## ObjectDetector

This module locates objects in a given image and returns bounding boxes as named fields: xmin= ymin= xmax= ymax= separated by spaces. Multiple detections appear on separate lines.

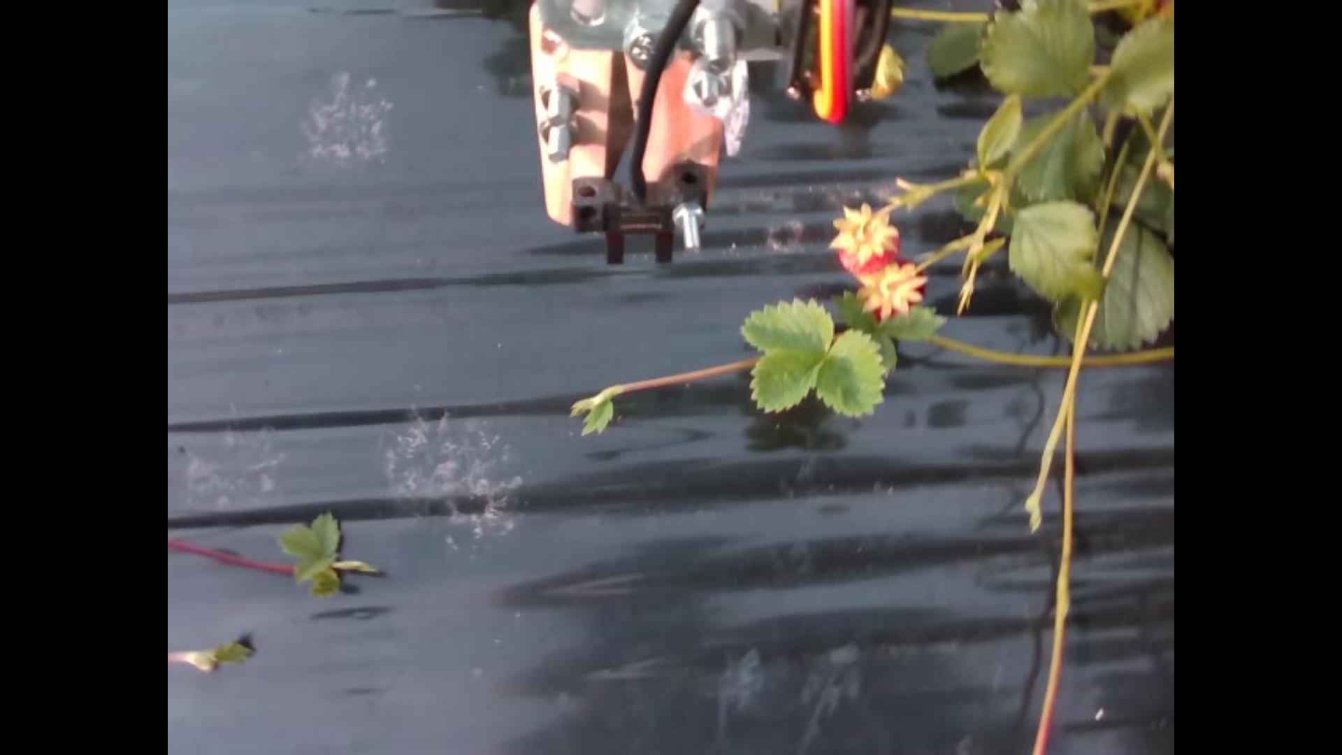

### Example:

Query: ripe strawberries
xmin=864 ymin=254 xmax=935 ymax=321
xmin=822 ymin=207 xmax=902 ymax=285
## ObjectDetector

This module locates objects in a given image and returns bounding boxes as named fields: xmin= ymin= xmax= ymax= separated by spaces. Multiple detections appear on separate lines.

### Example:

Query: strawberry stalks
xmin=892 ymin=230 xmax=979 ymax=293
xmin=857 ymin=179 xmax=943 ymax=241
